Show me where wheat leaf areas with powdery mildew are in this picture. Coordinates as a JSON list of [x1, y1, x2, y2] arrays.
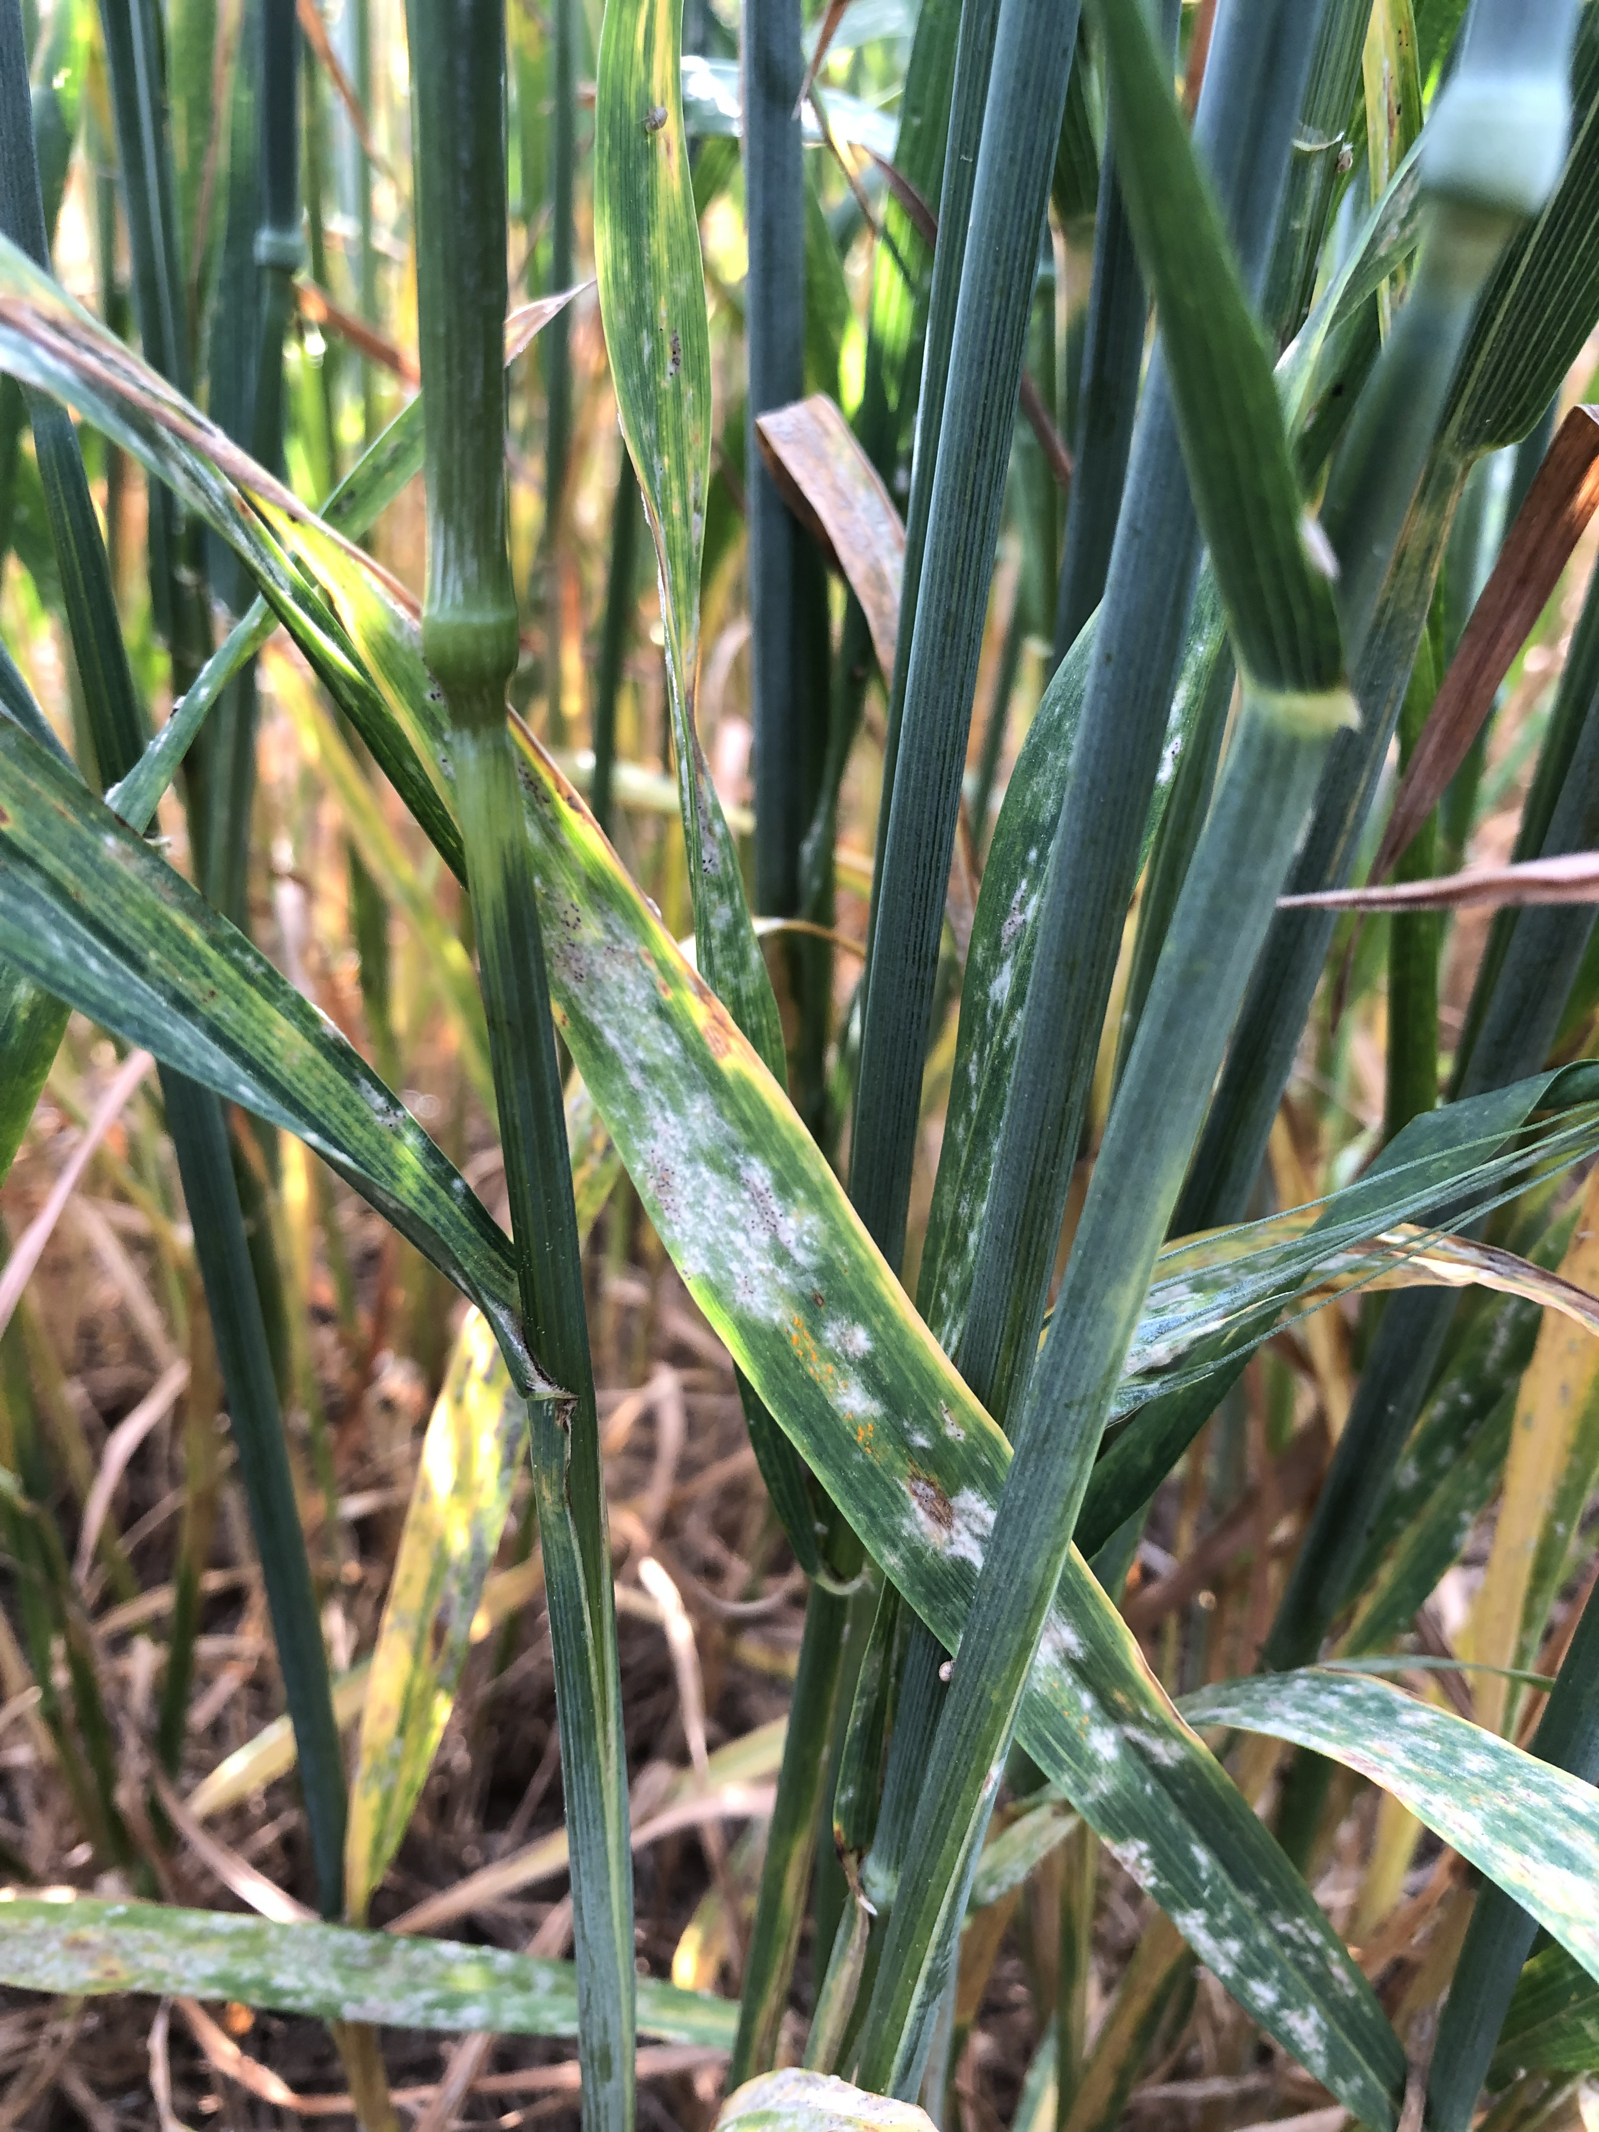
[[834, 1655, 896, 1846], [540, 774, 1008, 1605], [585, 109, 814, 991], [1199, 1620, 1599, 1961], [1110, 1226, 1304, 1426], [115, 645, 297, 812], [9, 1876, 582, 2063], [1031, 1570, 1419, 2084], [12, 304, 300, 606], [734, 2054, 946, 2132], [76, 797, 423, 1226]]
